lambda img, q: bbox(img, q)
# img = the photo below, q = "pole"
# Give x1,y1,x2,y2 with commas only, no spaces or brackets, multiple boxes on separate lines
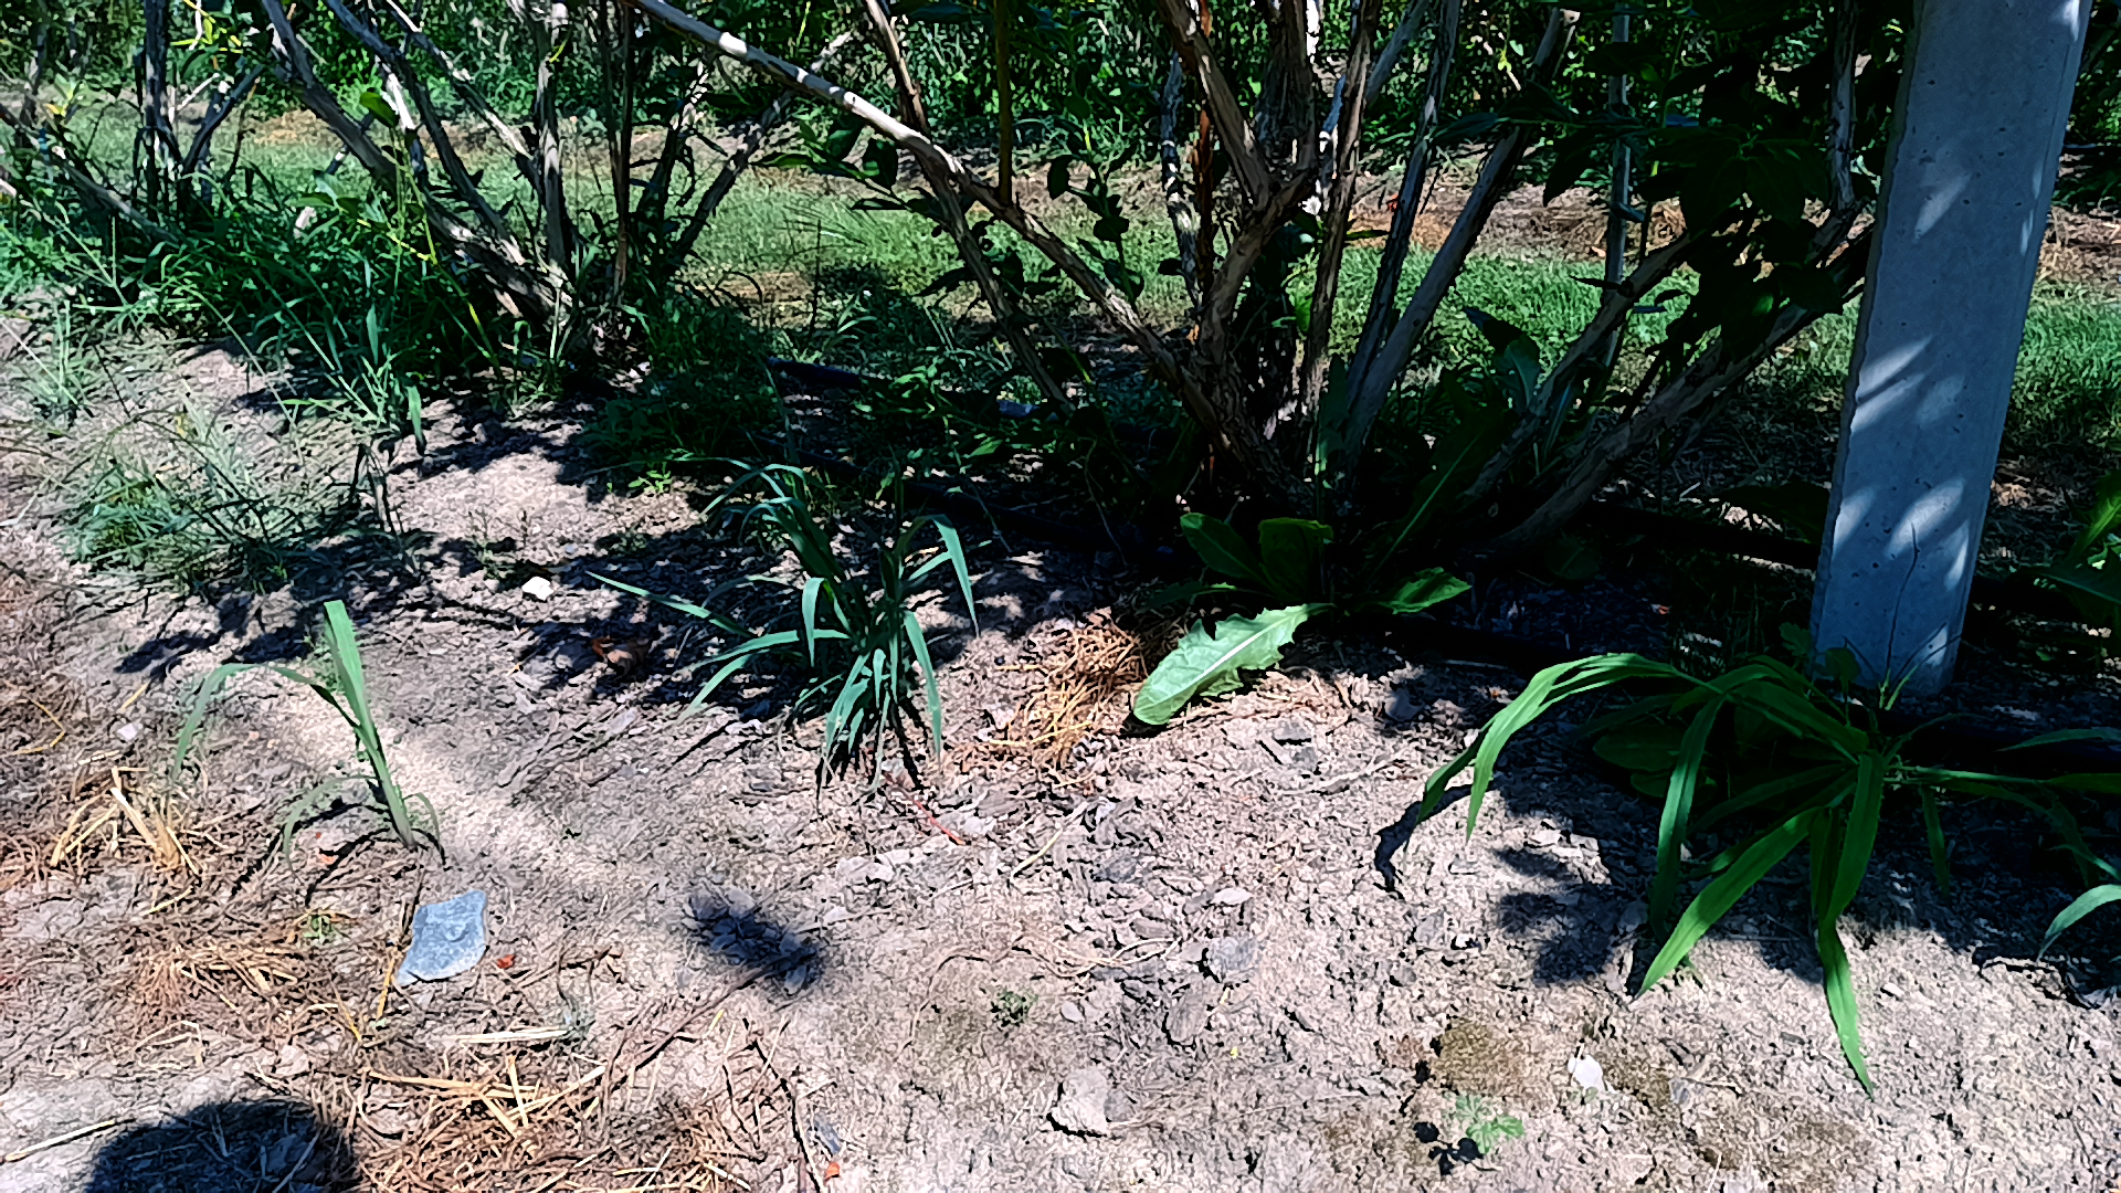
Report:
1792,1,2103,749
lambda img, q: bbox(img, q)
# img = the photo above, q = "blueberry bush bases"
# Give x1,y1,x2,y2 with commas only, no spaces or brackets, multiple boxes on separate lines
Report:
403,176,776,521
1061,234,1653,760
34,115,265,333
